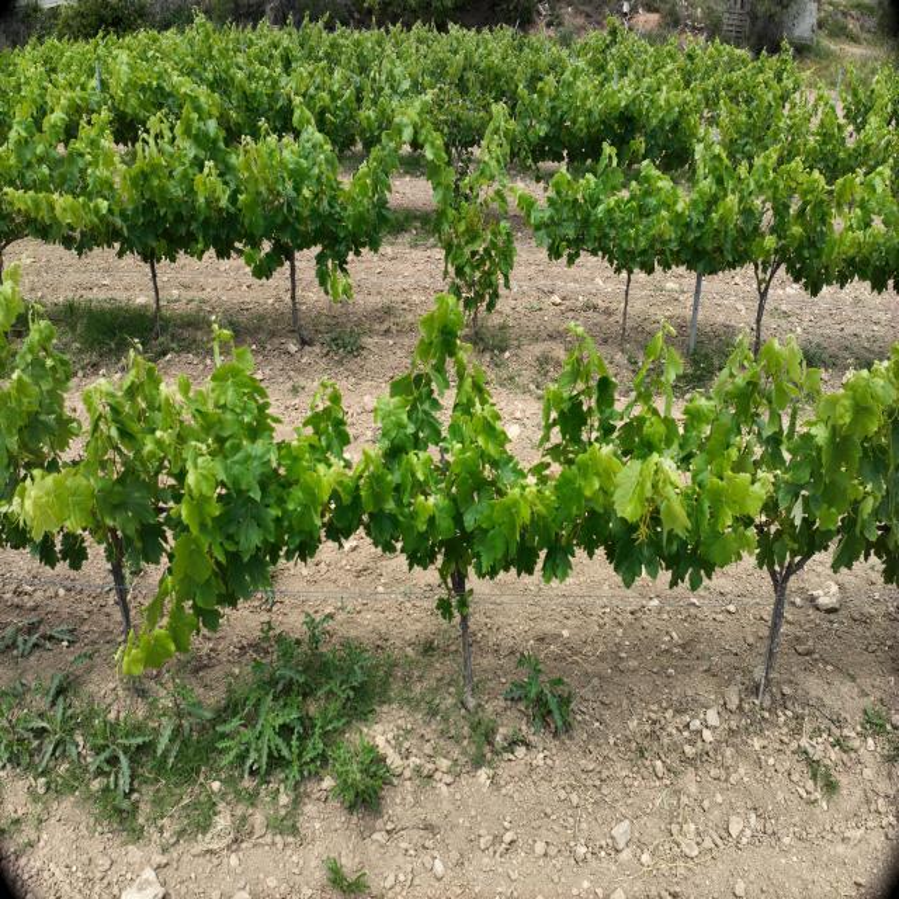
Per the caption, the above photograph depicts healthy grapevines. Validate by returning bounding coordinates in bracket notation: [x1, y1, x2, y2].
[0, 323, 354, 708]
[587, 336, 899, 732]
[336, 313, 597, 712]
